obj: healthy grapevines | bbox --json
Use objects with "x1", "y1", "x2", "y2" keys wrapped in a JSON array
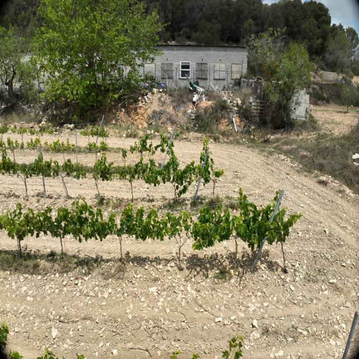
[
  {"x1": 36, "y1": 196, "x2": 102, "y2": 263},
  {"x1": 98, "y1": 203, "x2": 155, "y2": 265},
  {"x1": 2, "y1": 199, "x2": 43, "y2": 261},
  {"x1": 152, "y1": 207, "x2": 215, "y2": 273},
  {"x1": 206, "y1": 186, "x2": 270, "y2": 270},
  {"x1": 261, "y1": 190, "x2": 305, "y2": 277}
]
